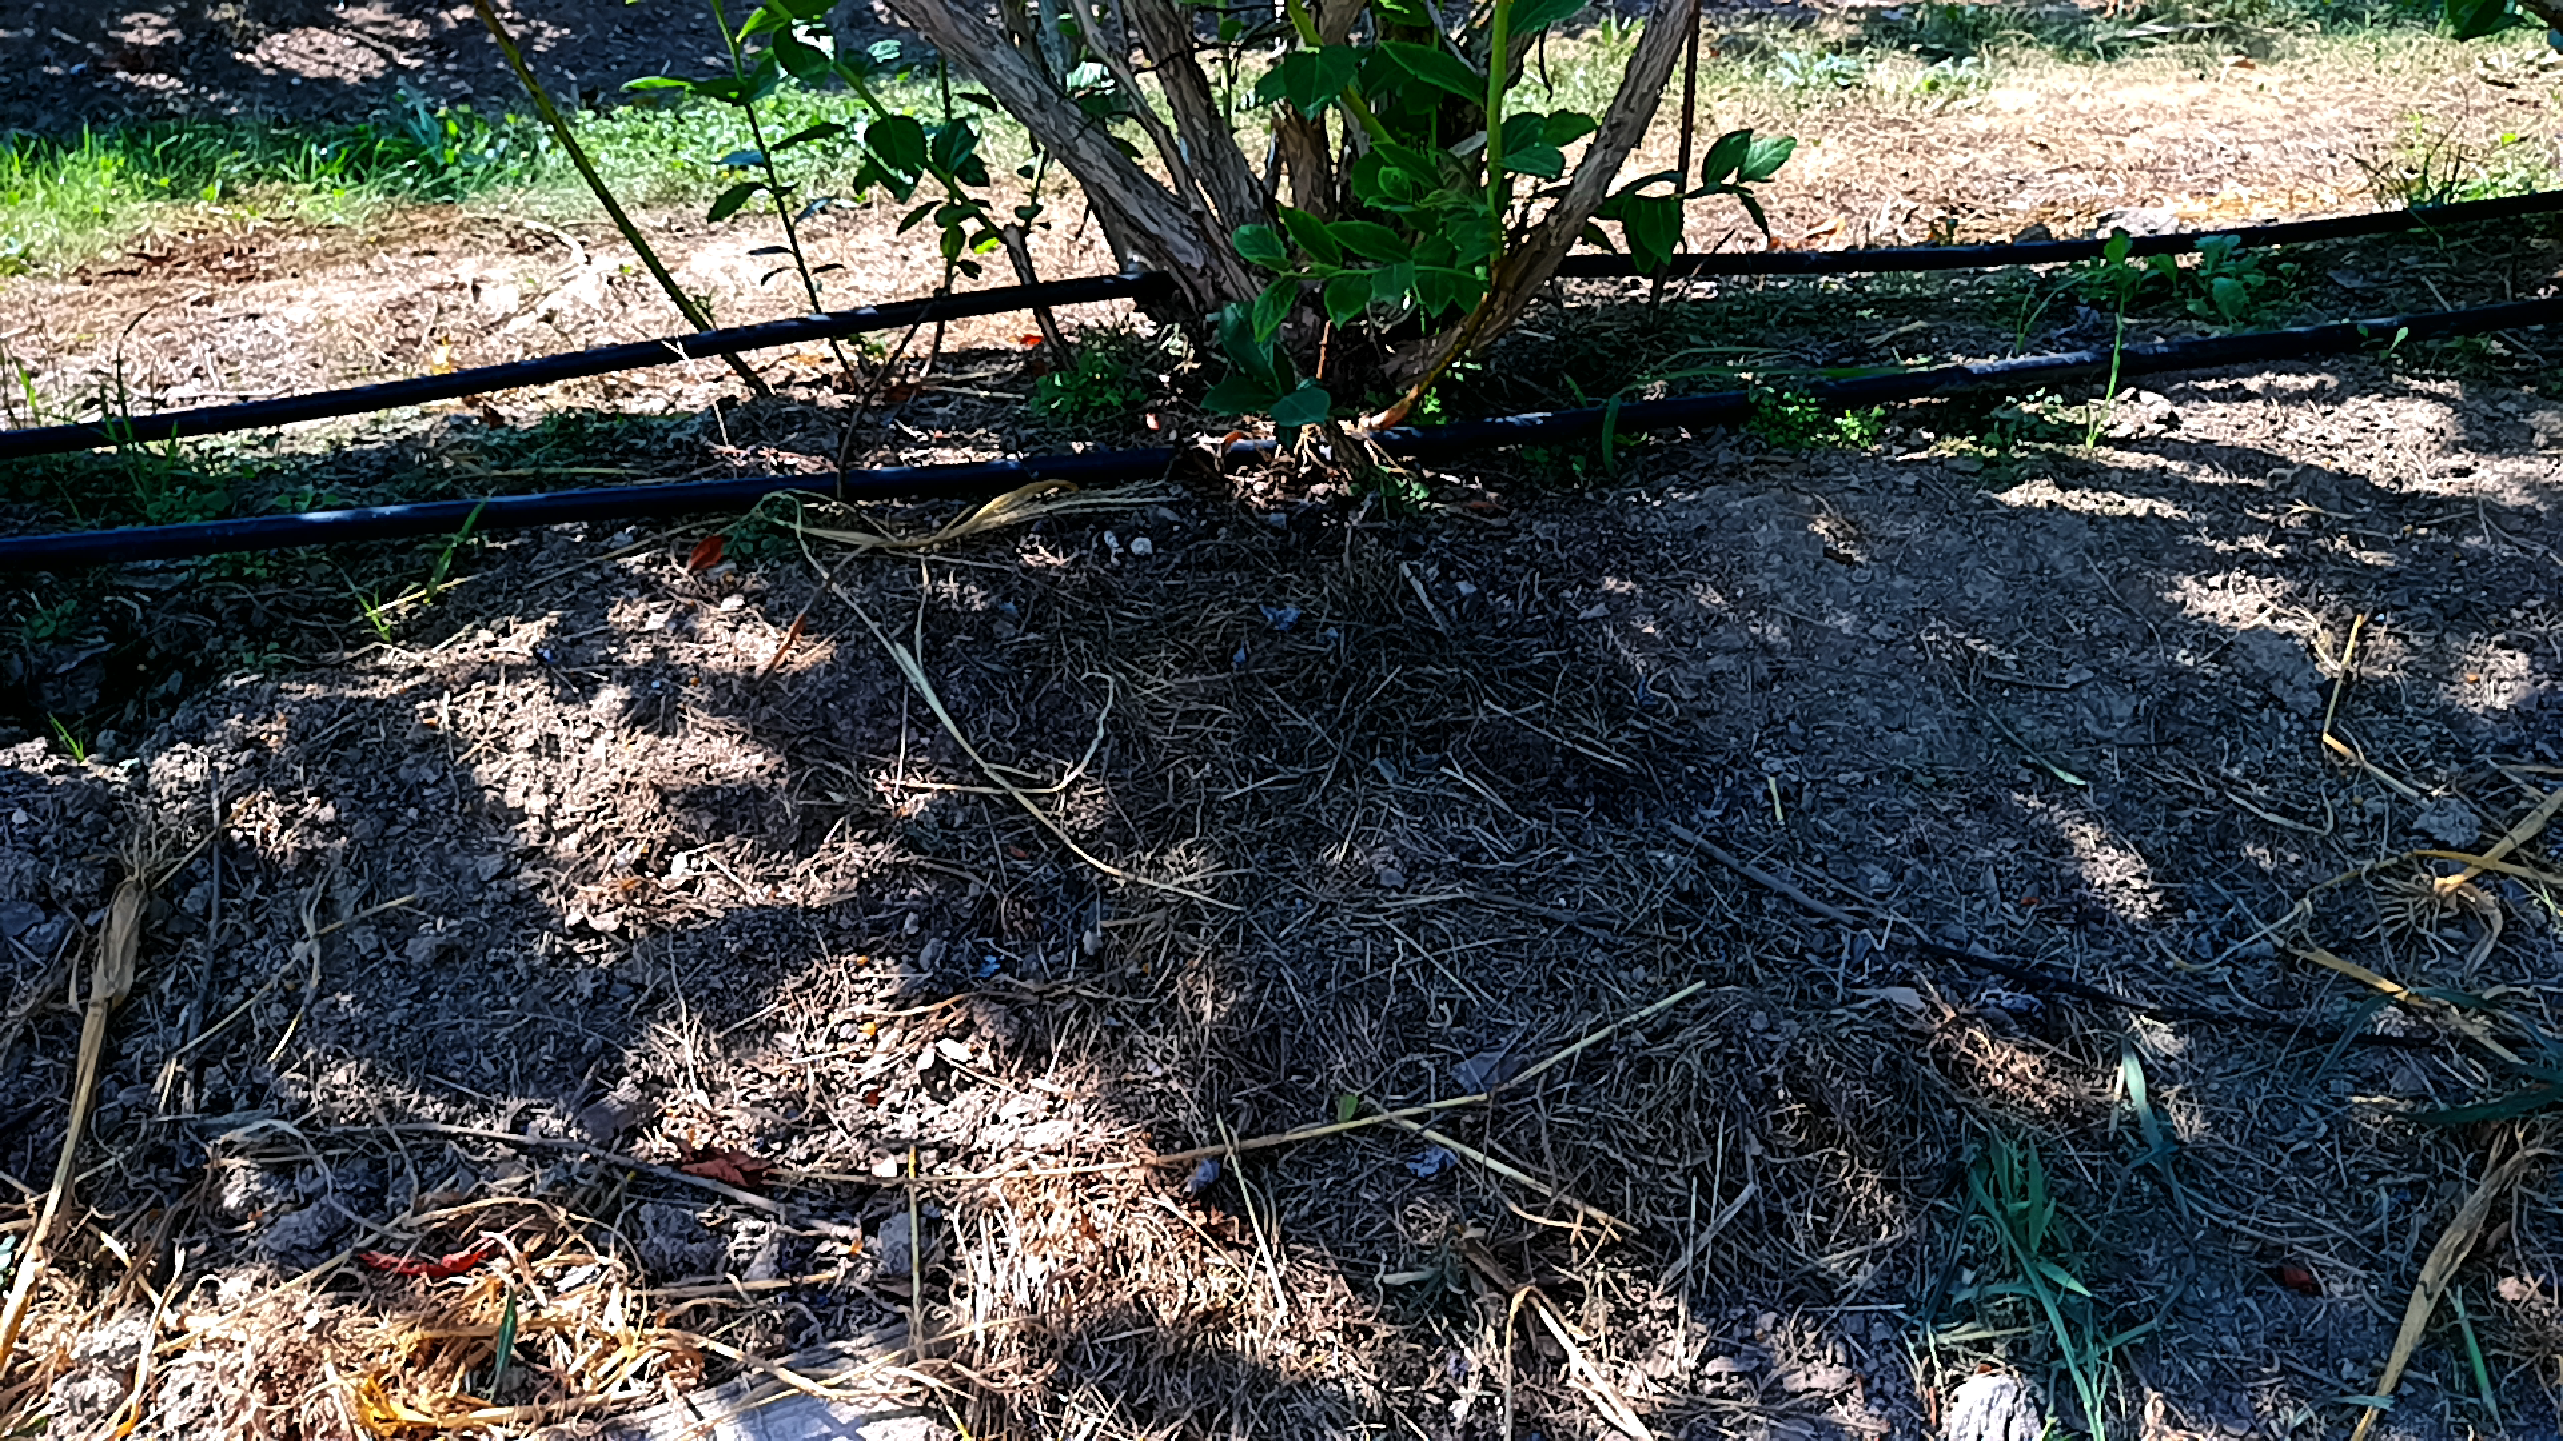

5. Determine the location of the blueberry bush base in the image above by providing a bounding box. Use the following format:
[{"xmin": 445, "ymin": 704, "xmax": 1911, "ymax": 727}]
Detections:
[{"xmin": 852, "ymin": 0, "xmax": 1731, "ymax": 477}]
